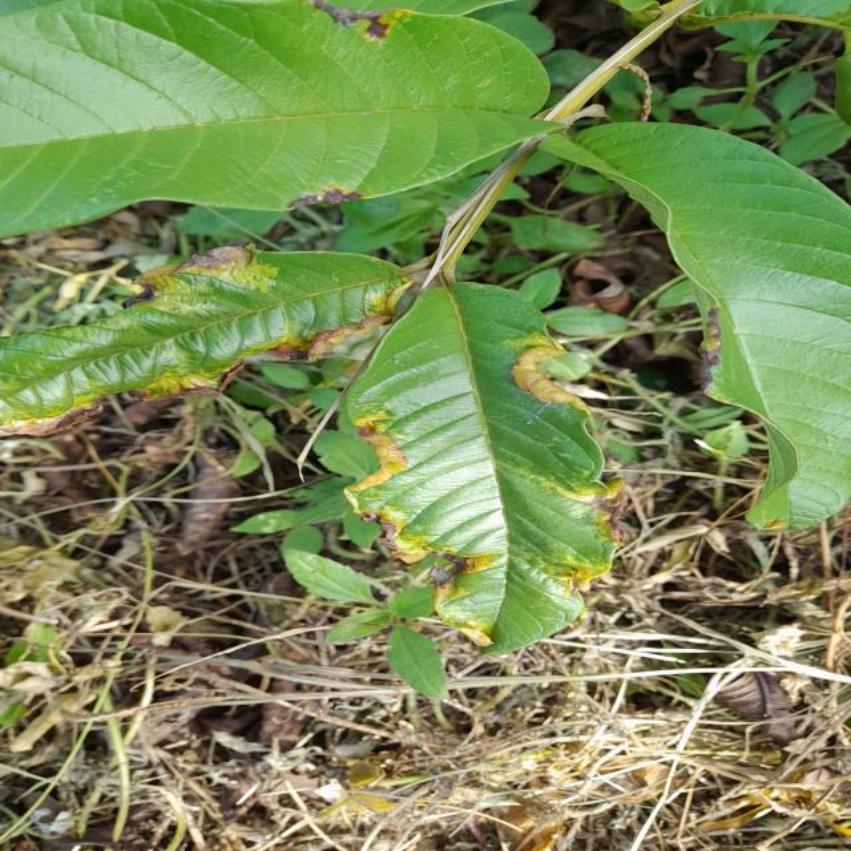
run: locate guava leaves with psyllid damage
[334,261,641,686]
[8,223,426,452]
